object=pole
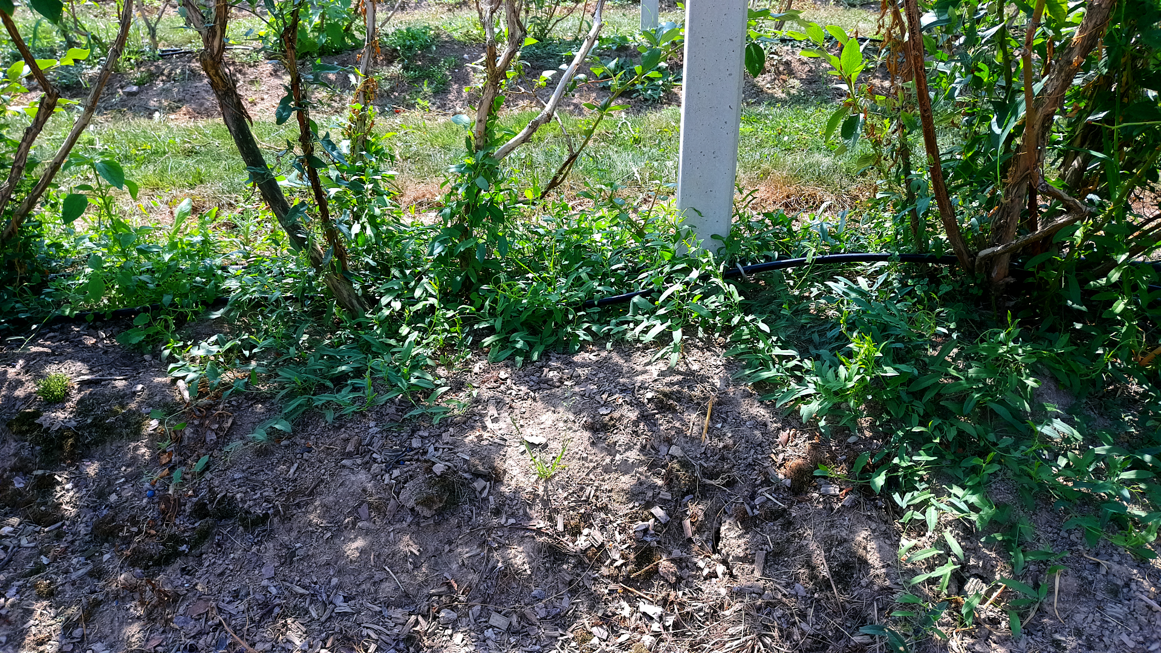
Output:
[667,5,748,285]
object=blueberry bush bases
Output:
[880,146,1139,375]
[235,129,545,395]
[1,129,97,350]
